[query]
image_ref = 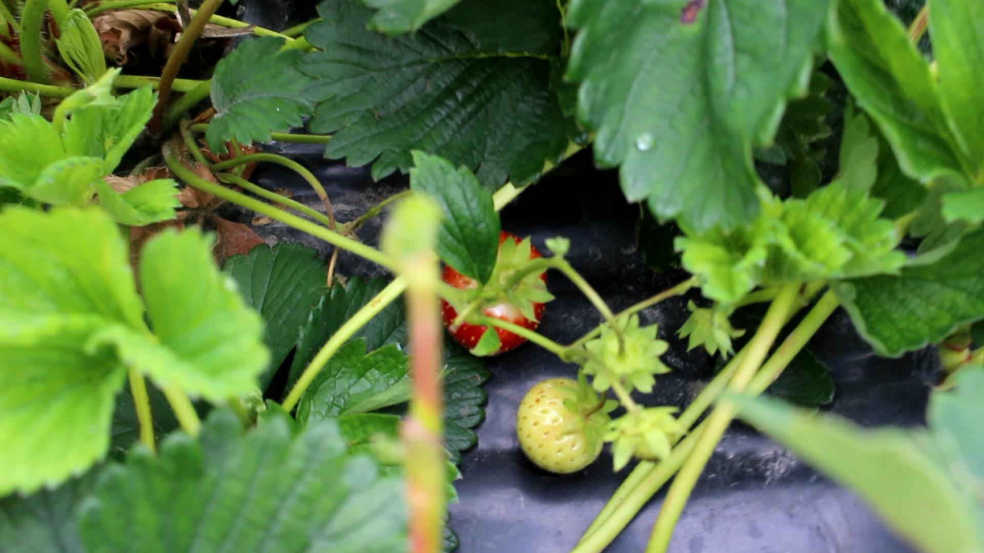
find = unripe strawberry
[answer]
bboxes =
[508,385,612,472]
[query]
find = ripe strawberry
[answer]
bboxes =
[412,215,582,381]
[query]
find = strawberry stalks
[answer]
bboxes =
[617,365,651,433]
[595,286,638,360]
[470,252,589,290]
[585,365,615,424]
